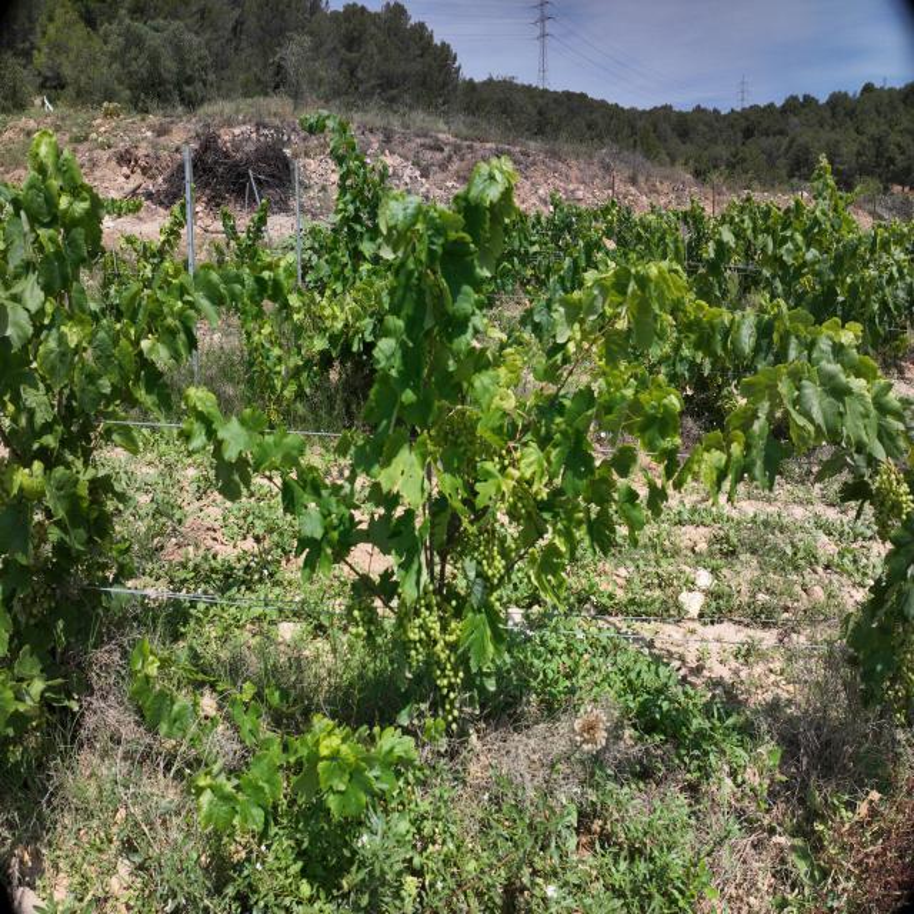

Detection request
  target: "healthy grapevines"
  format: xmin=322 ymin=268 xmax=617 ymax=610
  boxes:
xmin=0 ymin=144 xmax=197 ymax=783
xmin=703 ymin=297 xmax=914 ymax=735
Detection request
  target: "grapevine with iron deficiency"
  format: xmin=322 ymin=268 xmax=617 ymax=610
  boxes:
xmin=233 ymin=216 xmax=705 ymax=755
